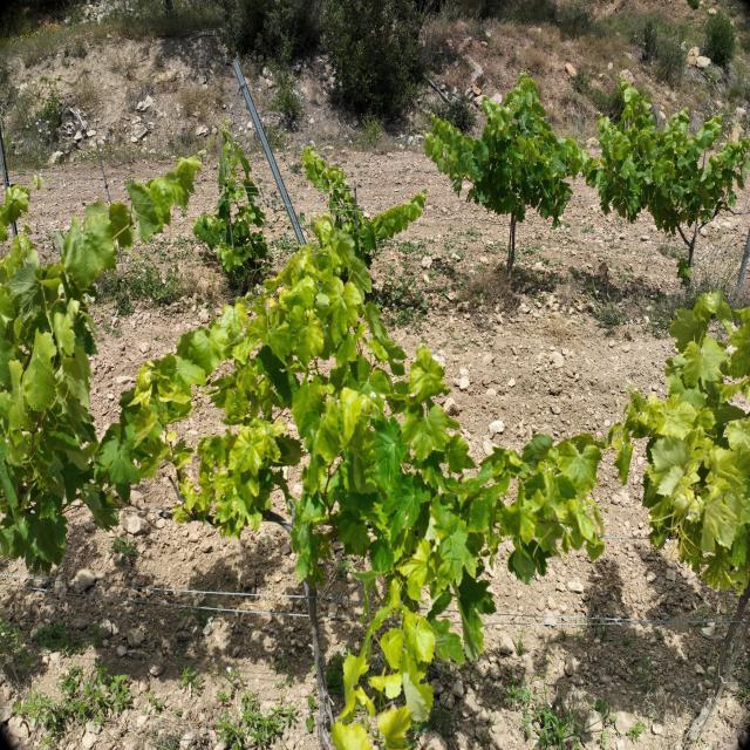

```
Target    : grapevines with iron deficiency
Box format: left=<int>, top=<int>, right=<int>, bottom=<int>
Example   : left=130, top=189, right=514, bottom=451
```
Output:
left=118, top=223, right=606, bottom=750
left=607, top=283, right=750, bottom=707
left=0, top=198, right=117, bottom=620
